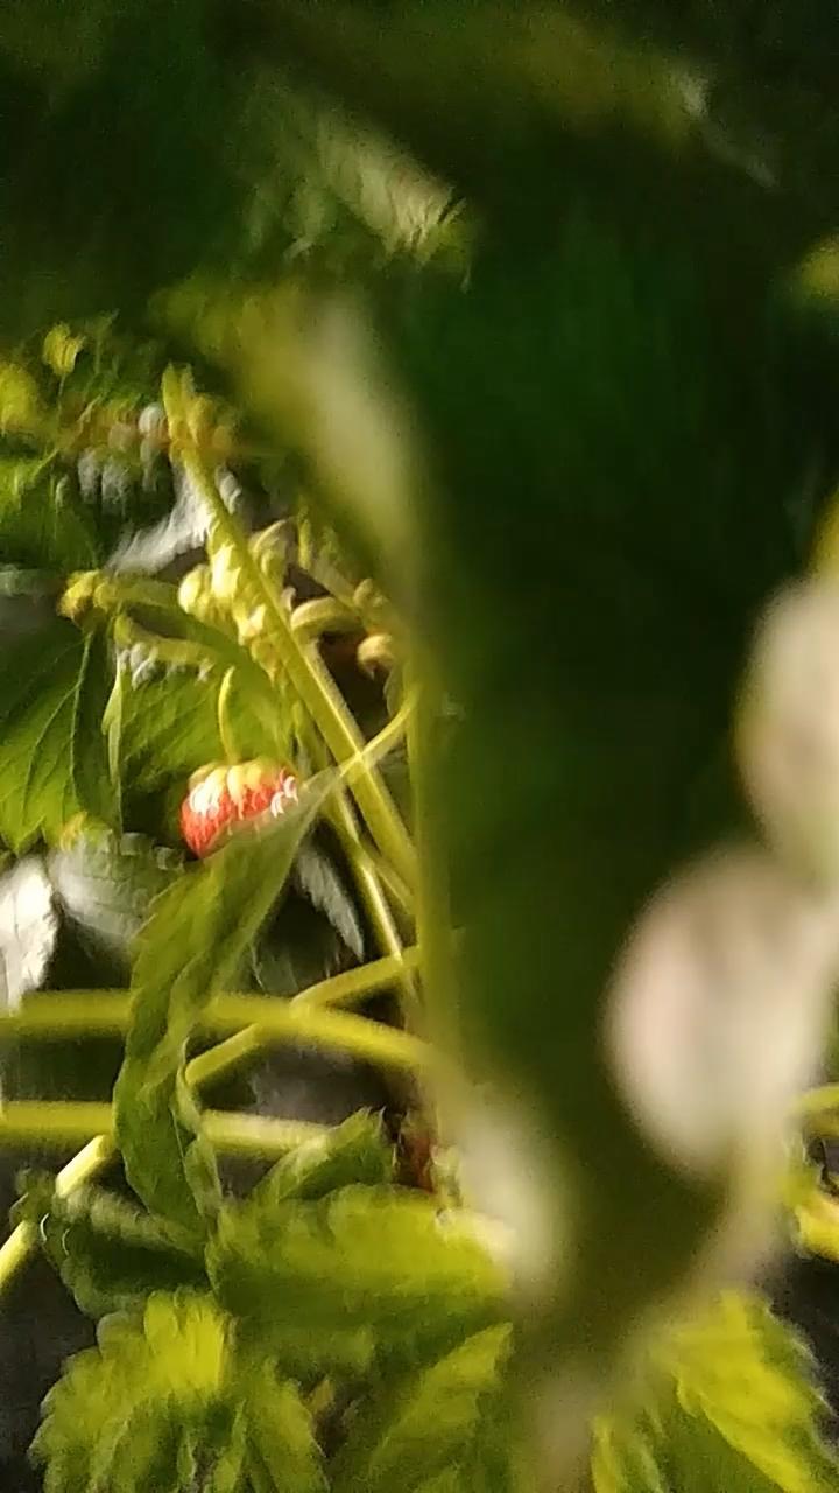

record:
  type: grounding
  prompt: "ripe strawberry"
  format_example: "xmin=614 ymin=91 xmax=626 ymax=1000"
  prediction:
xmin=166 ymin=776 xmax=306 ymax=870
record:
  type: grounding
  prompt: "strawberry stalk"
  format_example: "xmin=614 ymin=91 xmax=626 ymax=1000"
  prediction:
xmin=207 ymin=664 xmax=255 ymax=795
